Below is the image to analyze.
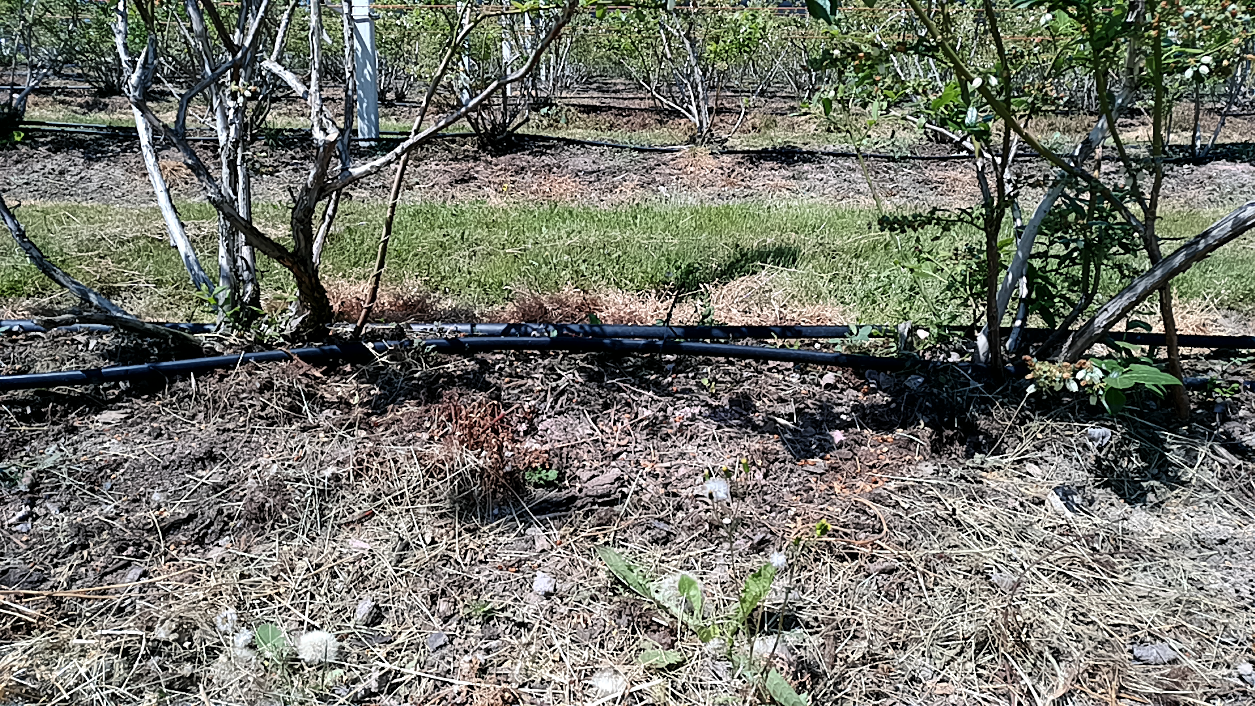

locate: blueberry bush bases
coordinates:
[1144,102,1231,175]
[76,65,135,103]
[445,97,539,160]
[1,83,35,154]
[928,233,1169,433]
[665,103,752,161]
[889,89,1003,172]
[134,195,413,386]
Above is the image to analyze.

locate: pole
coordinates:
[346,9,386,148]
